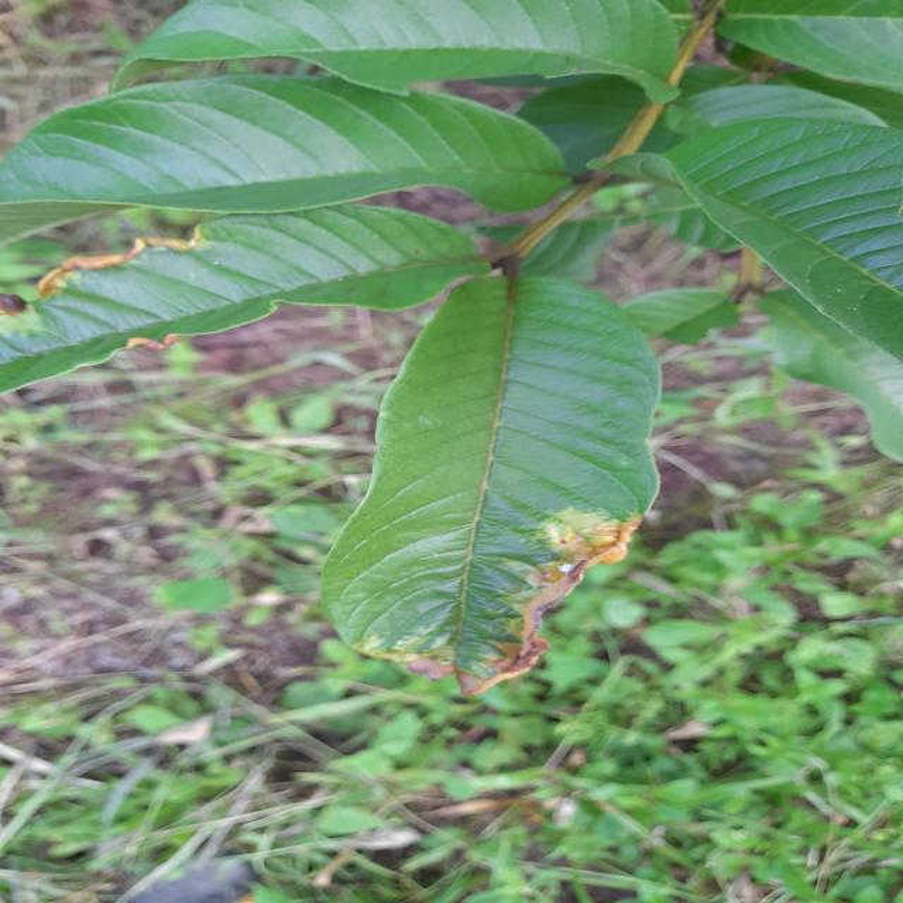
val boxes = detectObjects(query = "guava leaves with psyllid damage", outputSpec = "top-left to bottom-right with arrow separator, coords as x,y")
306,248 -> 722,713
0,206 -> 477,395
